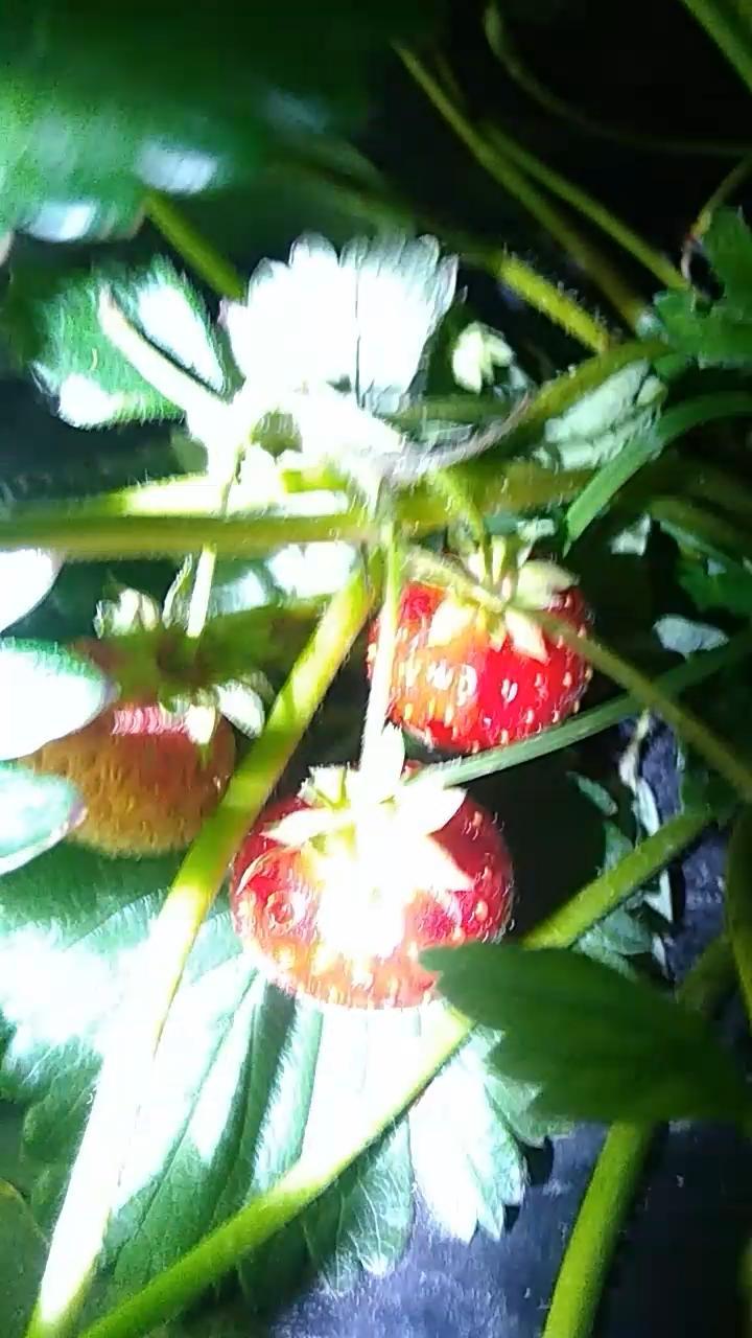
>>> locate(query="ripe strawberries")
[374,537,603,774]
[254,777,529,1025]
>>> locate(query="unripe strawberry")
[32,647,241,870]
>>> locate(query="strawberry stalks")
[453,558,608,661]
[147,555,229,698]
[307,584,422,870]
